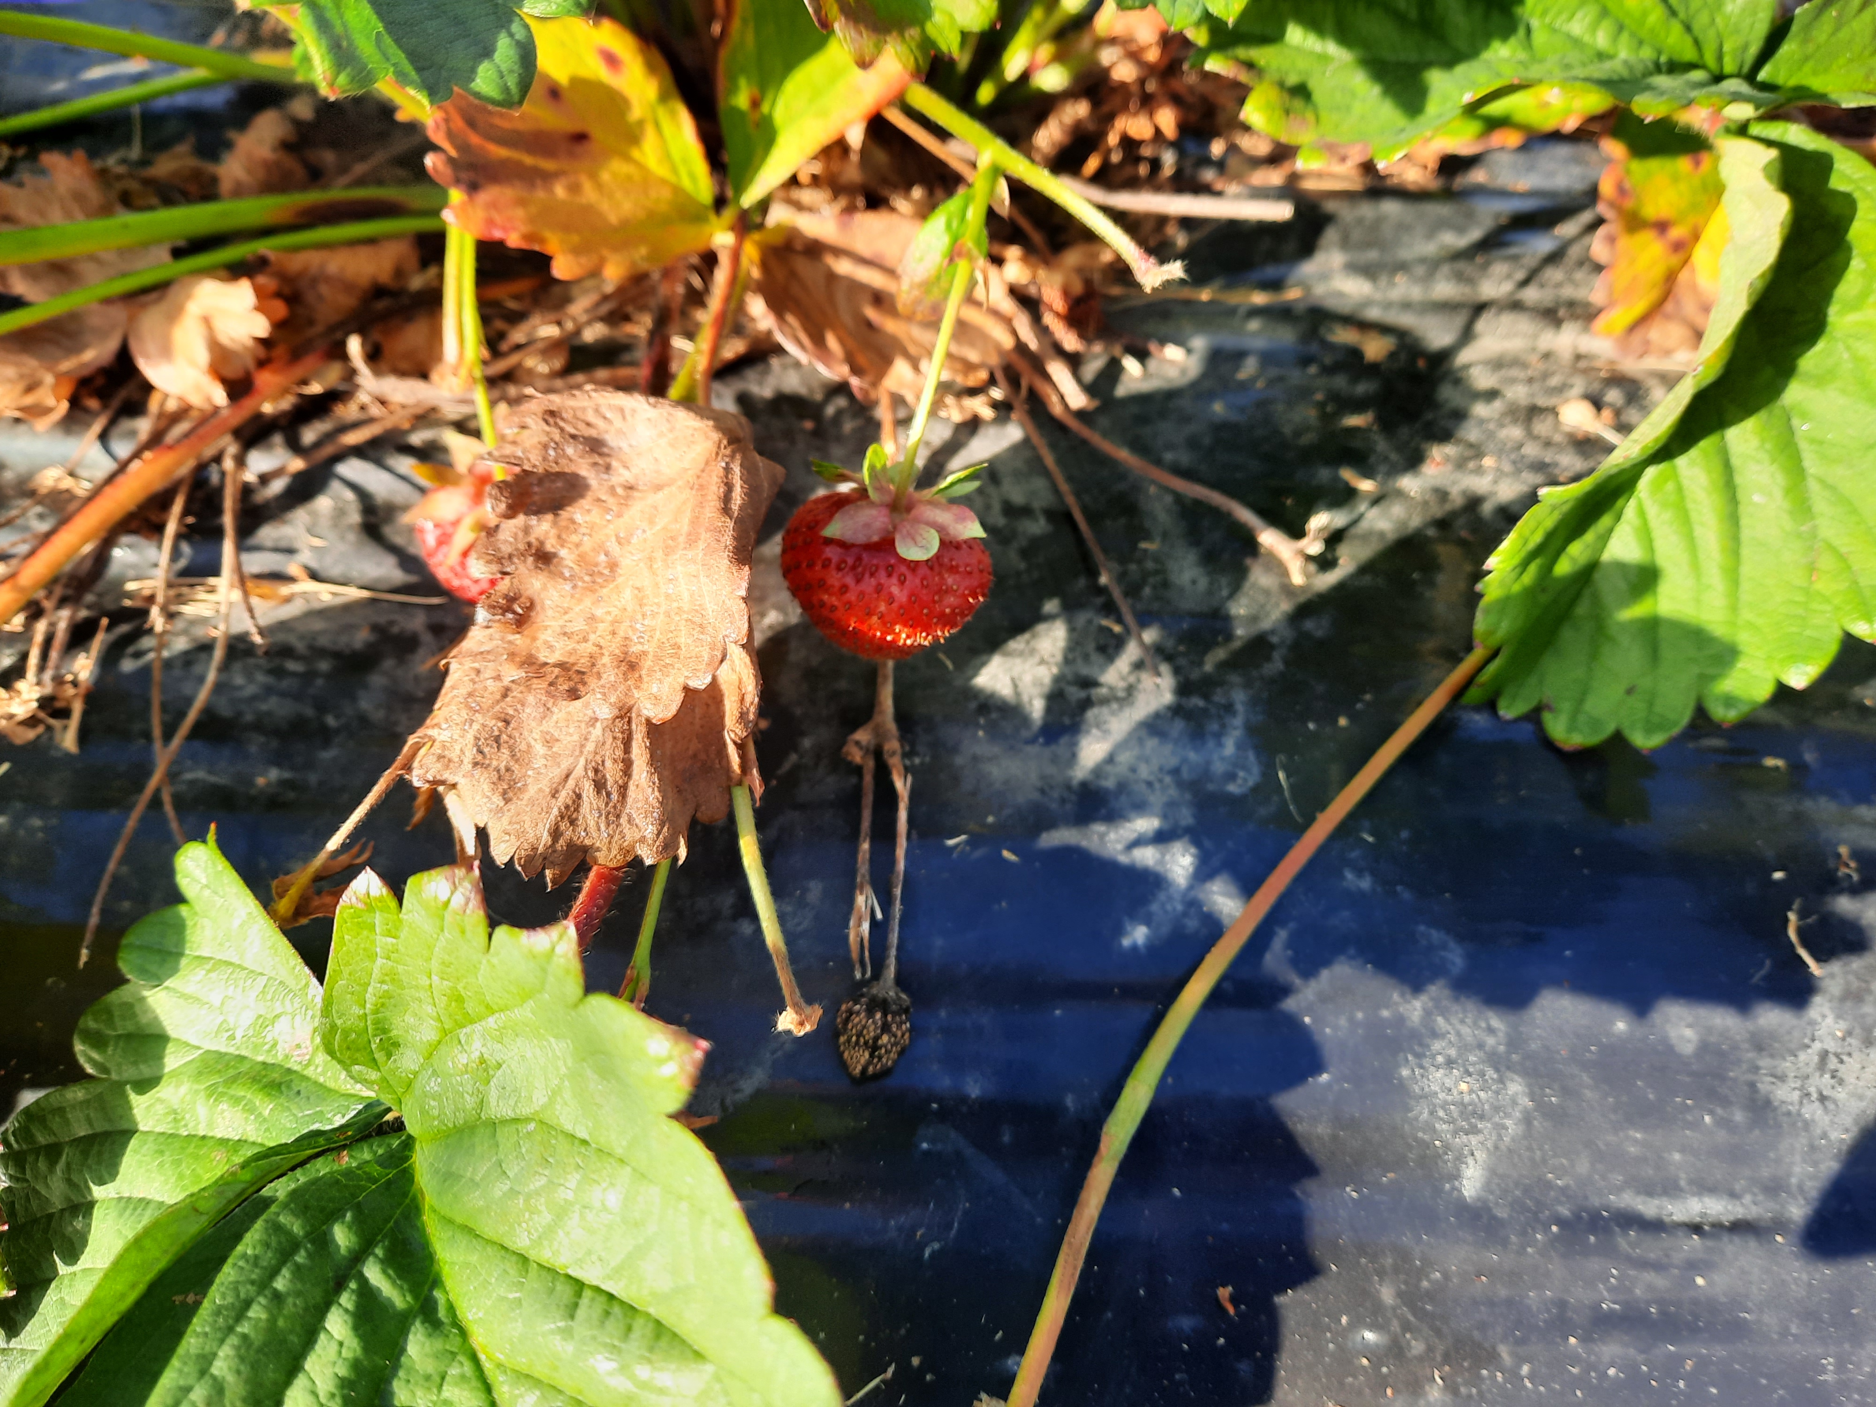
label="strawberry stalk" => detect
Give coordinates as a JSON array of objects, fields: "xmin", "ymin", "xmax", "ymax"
[{"xmin": 864, "ymin": 270, "xmax": 976, "ymax": 555}]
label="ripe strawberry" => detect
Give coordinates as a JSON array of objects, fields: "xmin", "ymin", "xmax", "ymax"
[{"xmin": 793, "ymin": 482, "xmax": 998, "ymax": 650}]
